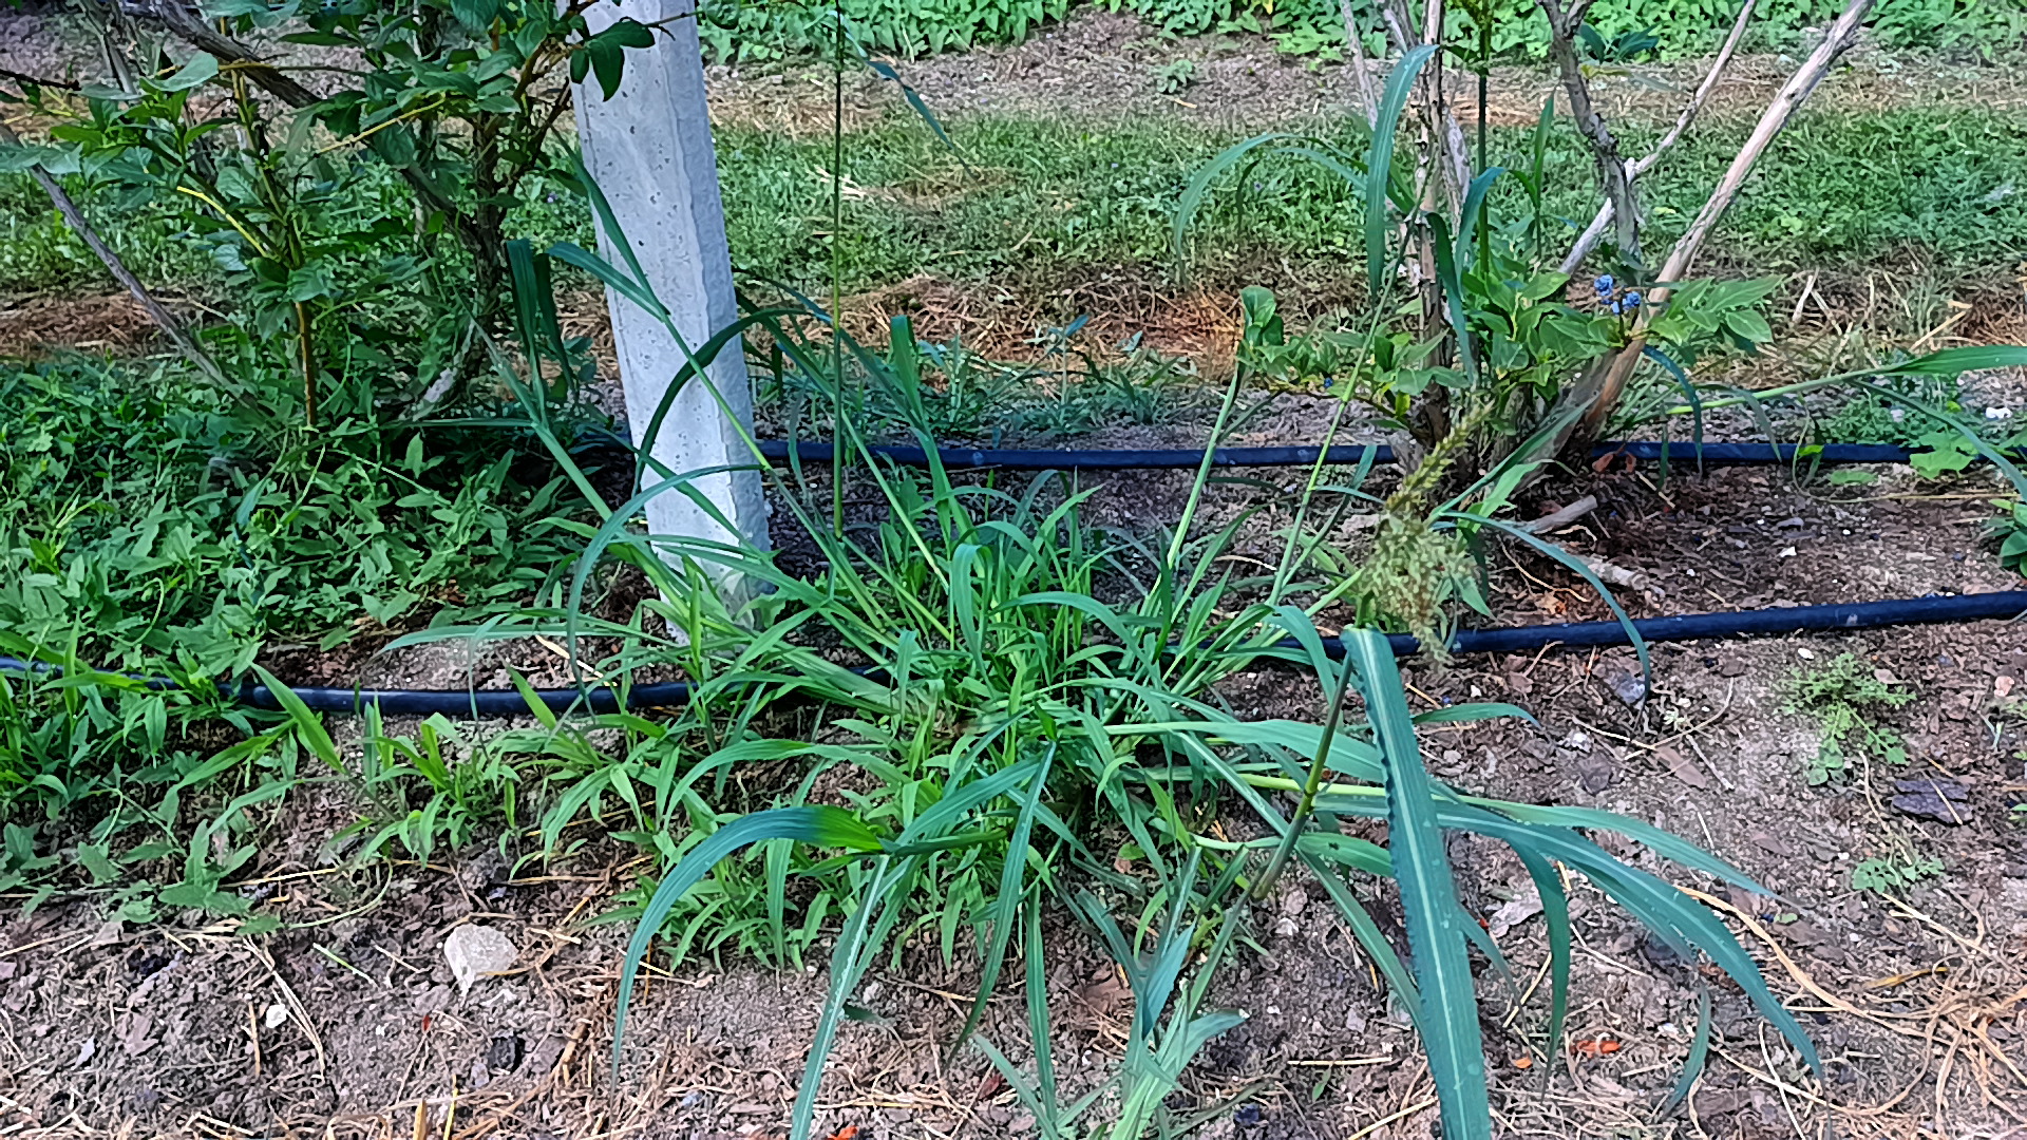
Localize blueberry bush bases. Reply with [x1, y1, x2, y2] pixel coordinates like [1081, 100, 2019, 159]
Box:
[107, 203, 542, 582]
[1321, 209, 1725, 635]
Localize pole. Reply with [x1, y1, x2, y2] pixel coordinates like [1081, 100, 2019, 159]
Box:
[579, 25, 791, 606]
